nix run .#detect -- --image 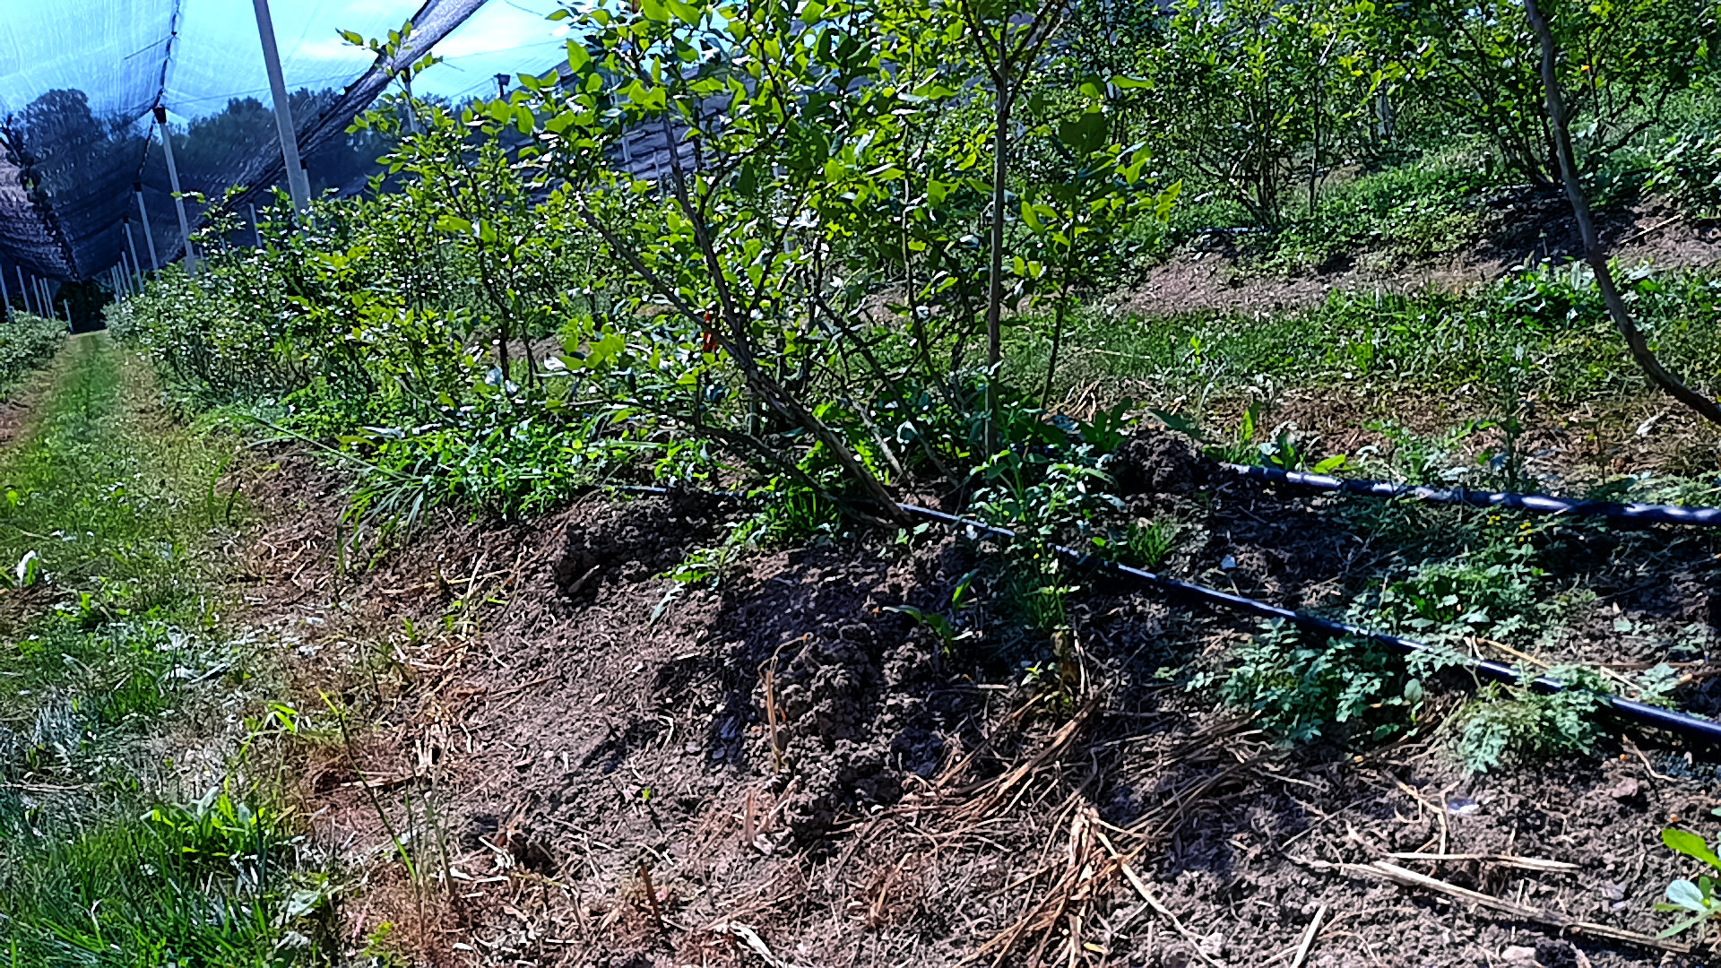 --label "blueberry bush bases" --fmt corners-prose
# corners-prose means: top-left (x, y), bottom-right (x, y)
top-left (396, 260), bottom-right (606, 546)
top-left (625, 291), bottom-right (1155, 605)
